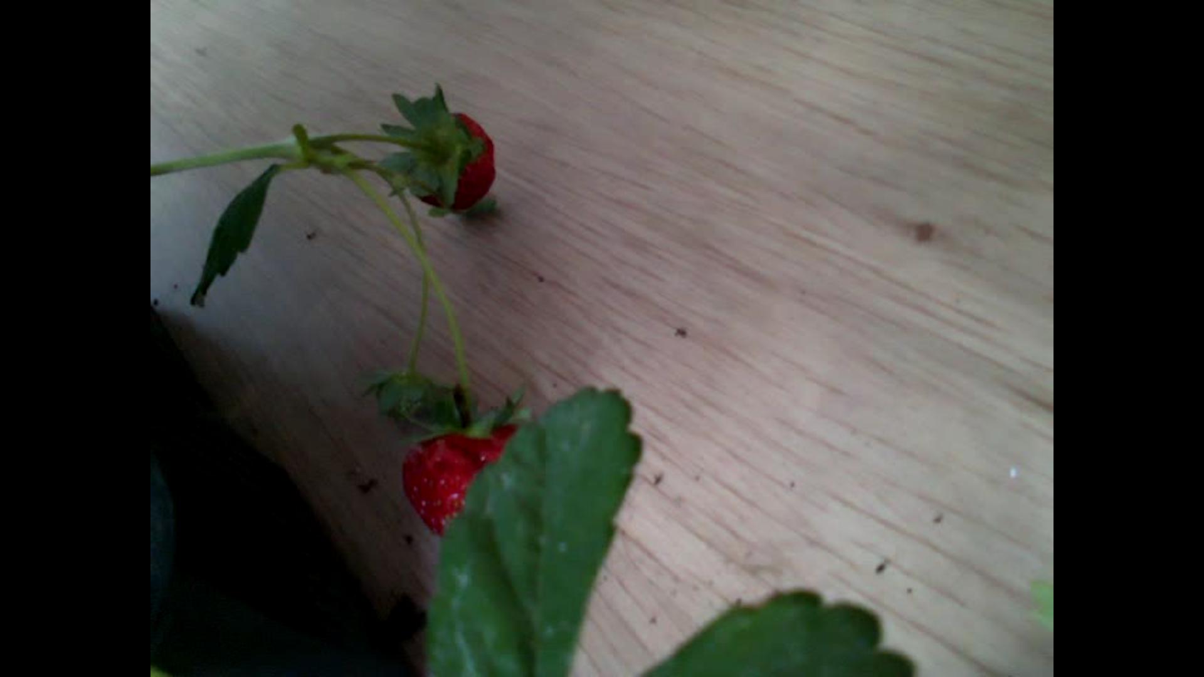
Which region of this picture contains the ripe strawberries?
[407,427,528,539]
[401,107,495,213]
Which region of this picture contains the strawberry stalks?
[441,297,496,430]
[351,119,462,165]
[404,283,430,380]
